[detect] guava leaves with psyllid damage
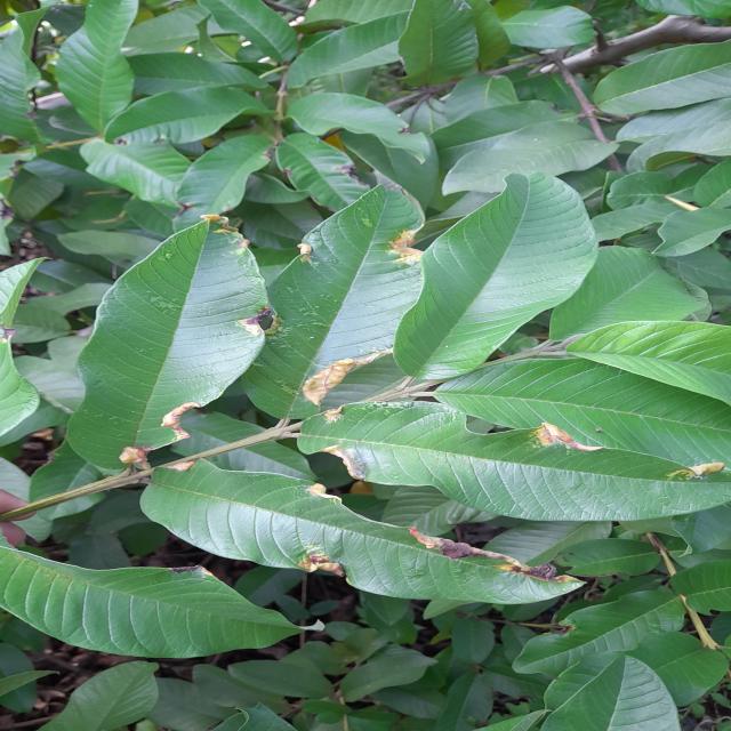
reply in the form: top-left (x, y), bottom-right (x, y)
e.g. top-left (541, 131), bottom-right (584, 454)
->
top-left (283, 396), bottom-right (731, 523)
top-left (137, 459), bottom-right (603, 612)
top-left (241, 164), bottom-right (439, 449)
top-left (63, 214), bottom-right (276, 489)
